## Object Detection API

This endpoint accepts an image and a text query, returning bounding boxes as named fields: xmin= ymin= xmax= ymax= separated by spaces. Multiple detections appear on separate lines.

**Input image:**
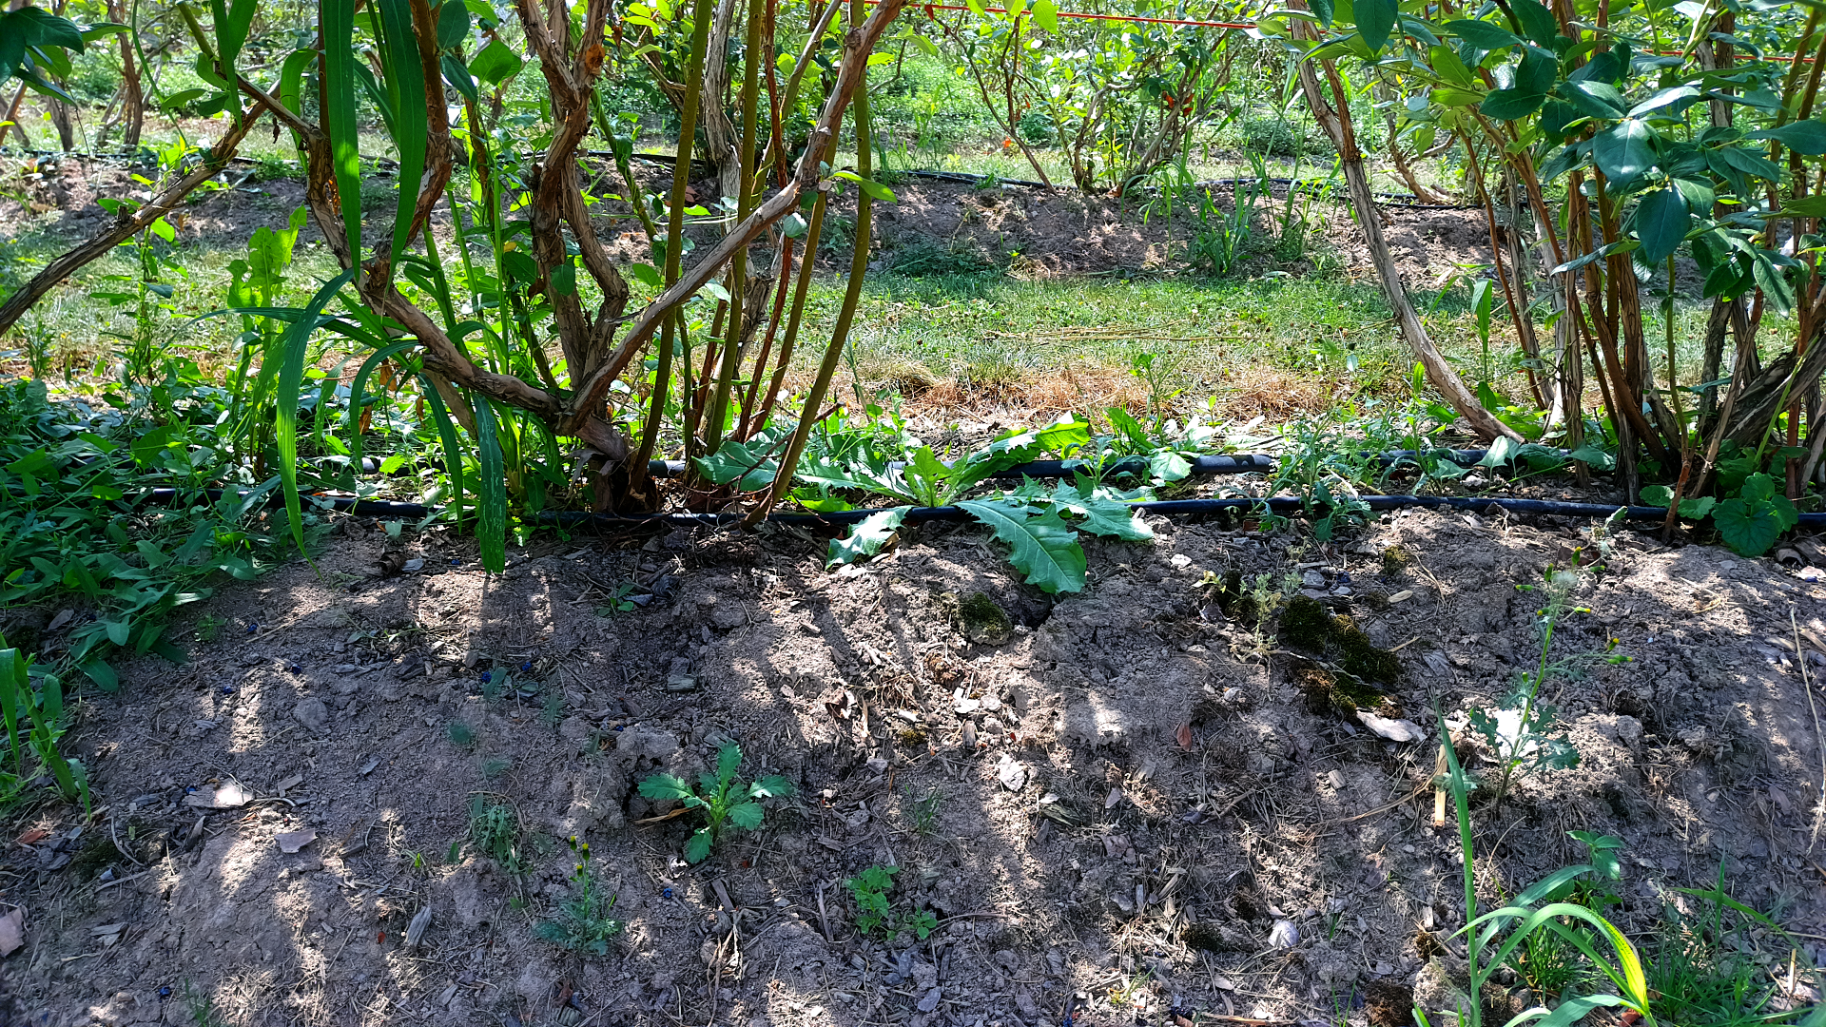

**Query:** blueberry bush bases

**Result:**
xmin=999 ymin=112 xmax=1201 ymax=253
xmin=1402 ymin=290 xmax=1826 ymax=590
xmin=366 ymin=284 xmax=886 ymax=597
